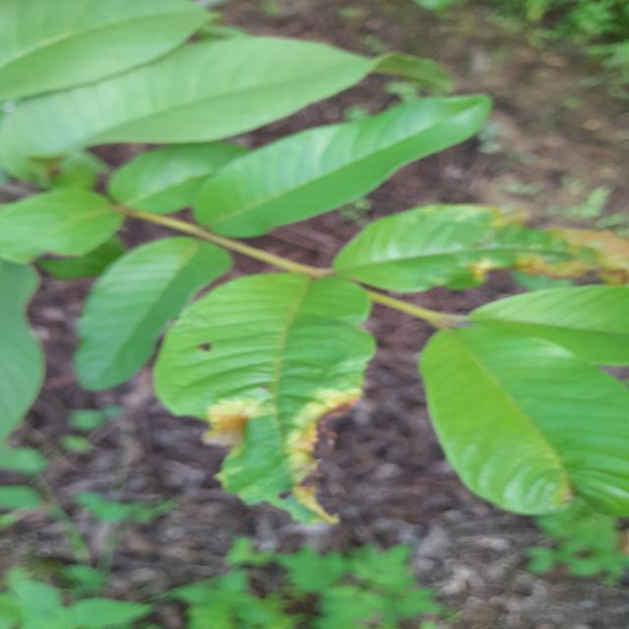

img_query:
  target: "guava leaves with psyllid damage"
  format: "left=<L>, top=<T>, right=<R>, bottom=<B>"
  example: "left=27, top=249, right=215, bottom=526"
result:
left=149, top=263, right=387, bottom=535
left=319, top=195, right=629, bottom=294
